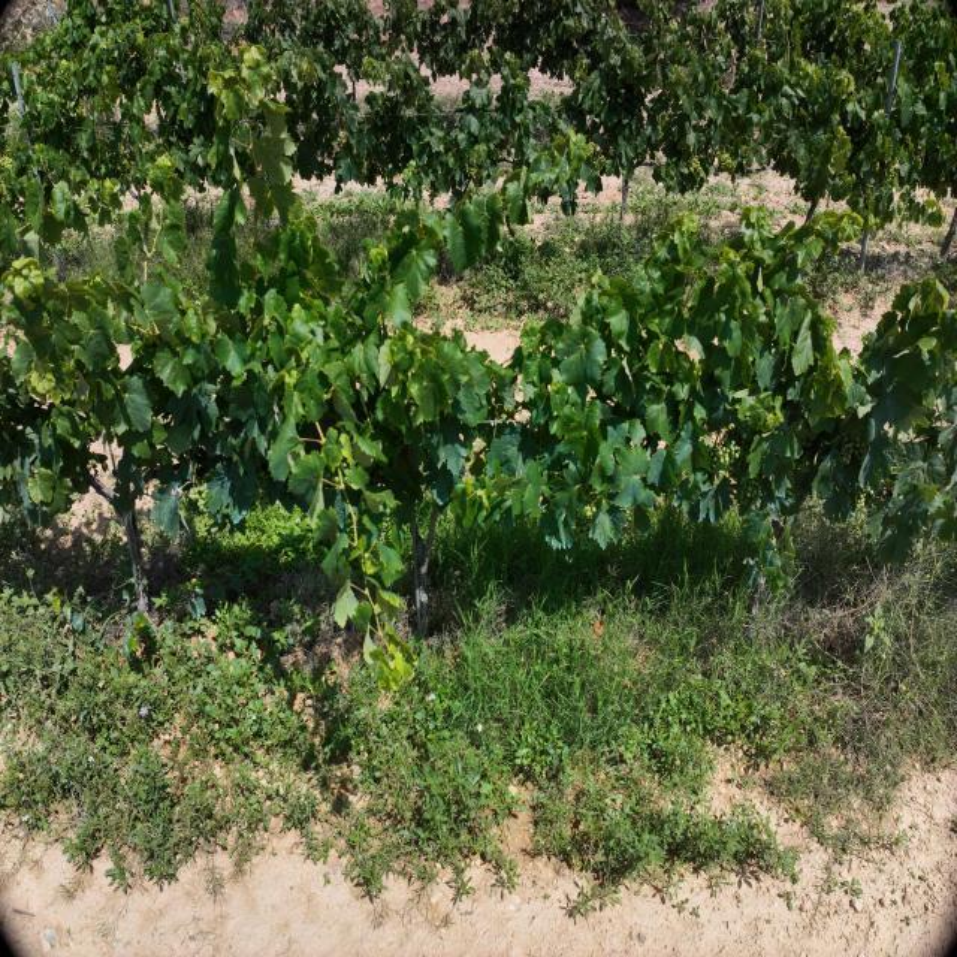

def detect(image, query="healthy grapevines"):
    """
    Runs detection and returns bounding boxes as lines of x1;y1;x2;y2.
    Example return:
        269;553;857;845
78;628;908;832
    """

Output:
547;233;957;655
0;248;277;659
265;225;552;678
